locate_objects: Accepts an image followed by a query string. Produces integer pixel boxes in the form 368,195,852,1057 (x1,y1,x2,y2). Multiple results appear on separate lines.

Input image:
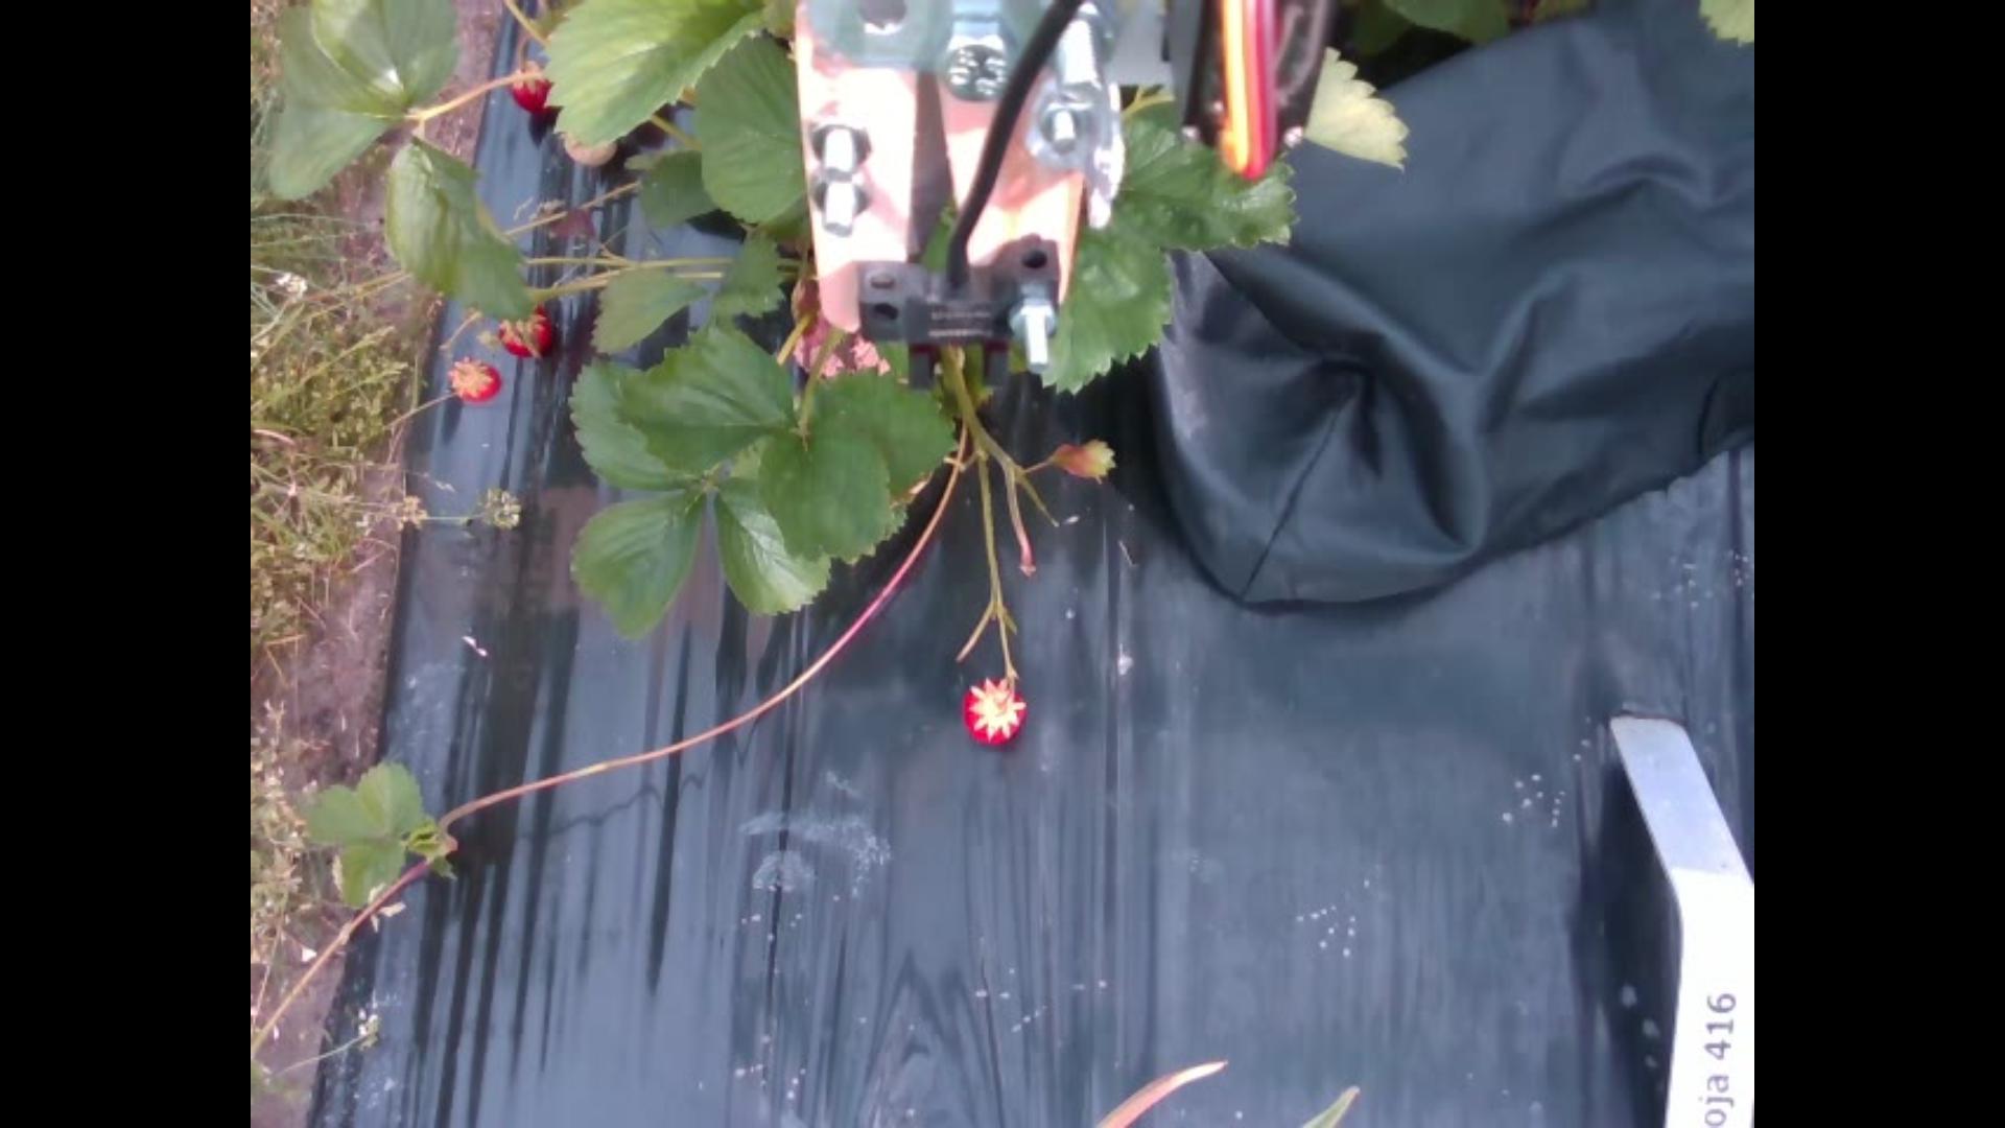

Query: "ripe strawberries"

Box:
441,361,510,406
505,64,561,118
505,310,564,360
948,677,1049,754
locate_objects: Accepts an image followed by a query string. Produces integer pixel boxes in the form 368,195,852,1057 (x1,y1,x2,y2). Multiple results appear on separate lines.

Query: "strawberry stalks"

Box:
979,611,1024,714
424,317,464,384
509,277,562,335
